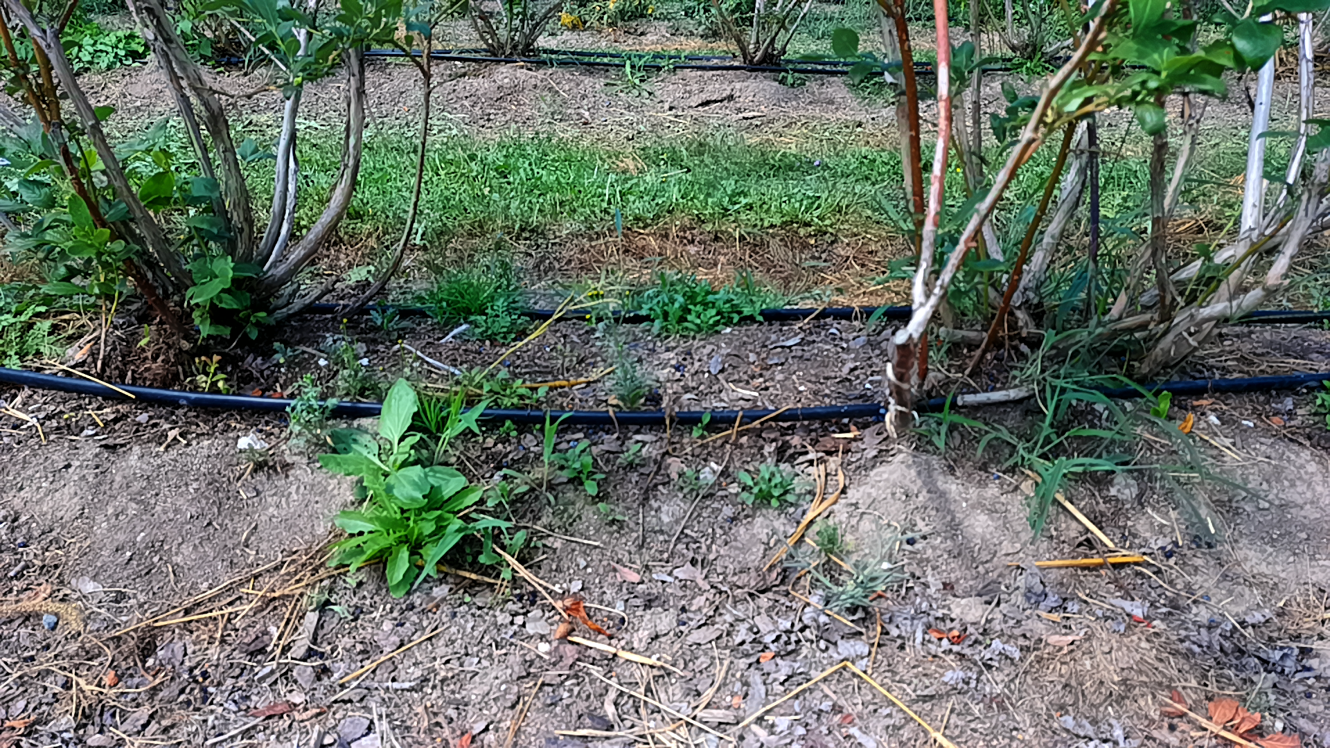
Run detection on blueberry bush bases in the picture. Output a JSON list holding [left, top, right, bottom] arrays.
[[61, 151, 416, 433], [469, 21, 552, 73], [885, 177, 1312, 448], [718, 27, 805, 82]]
